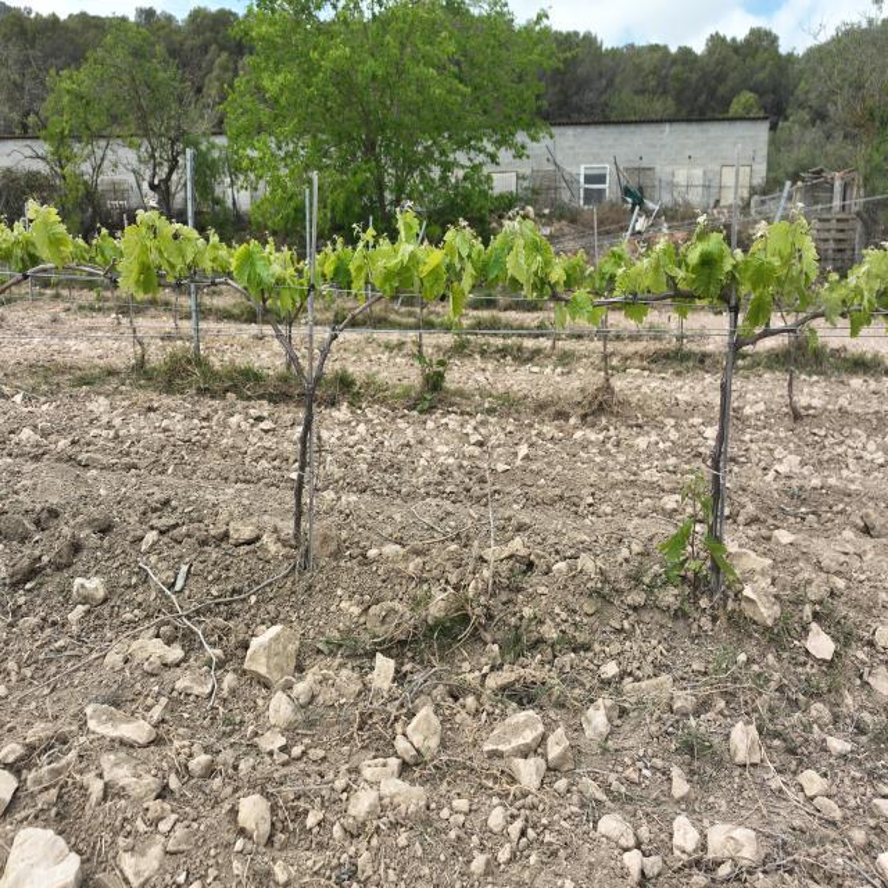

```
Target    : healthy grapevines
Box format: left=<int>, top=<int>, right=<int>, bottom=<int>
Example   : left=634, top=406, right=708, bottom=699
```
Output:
left=0, top=193, right=562, bottom=588
left=556, top=214, right=888, bottom=629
